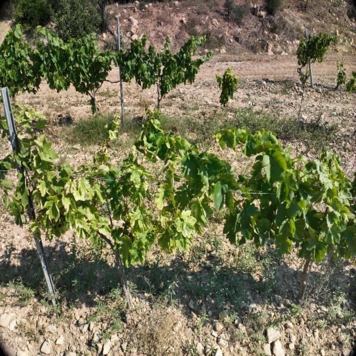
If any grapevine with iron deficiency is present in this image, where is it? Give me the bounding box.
[2,106,214,335]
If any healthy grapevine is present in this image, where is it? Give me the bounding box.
[210,119,356,318]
